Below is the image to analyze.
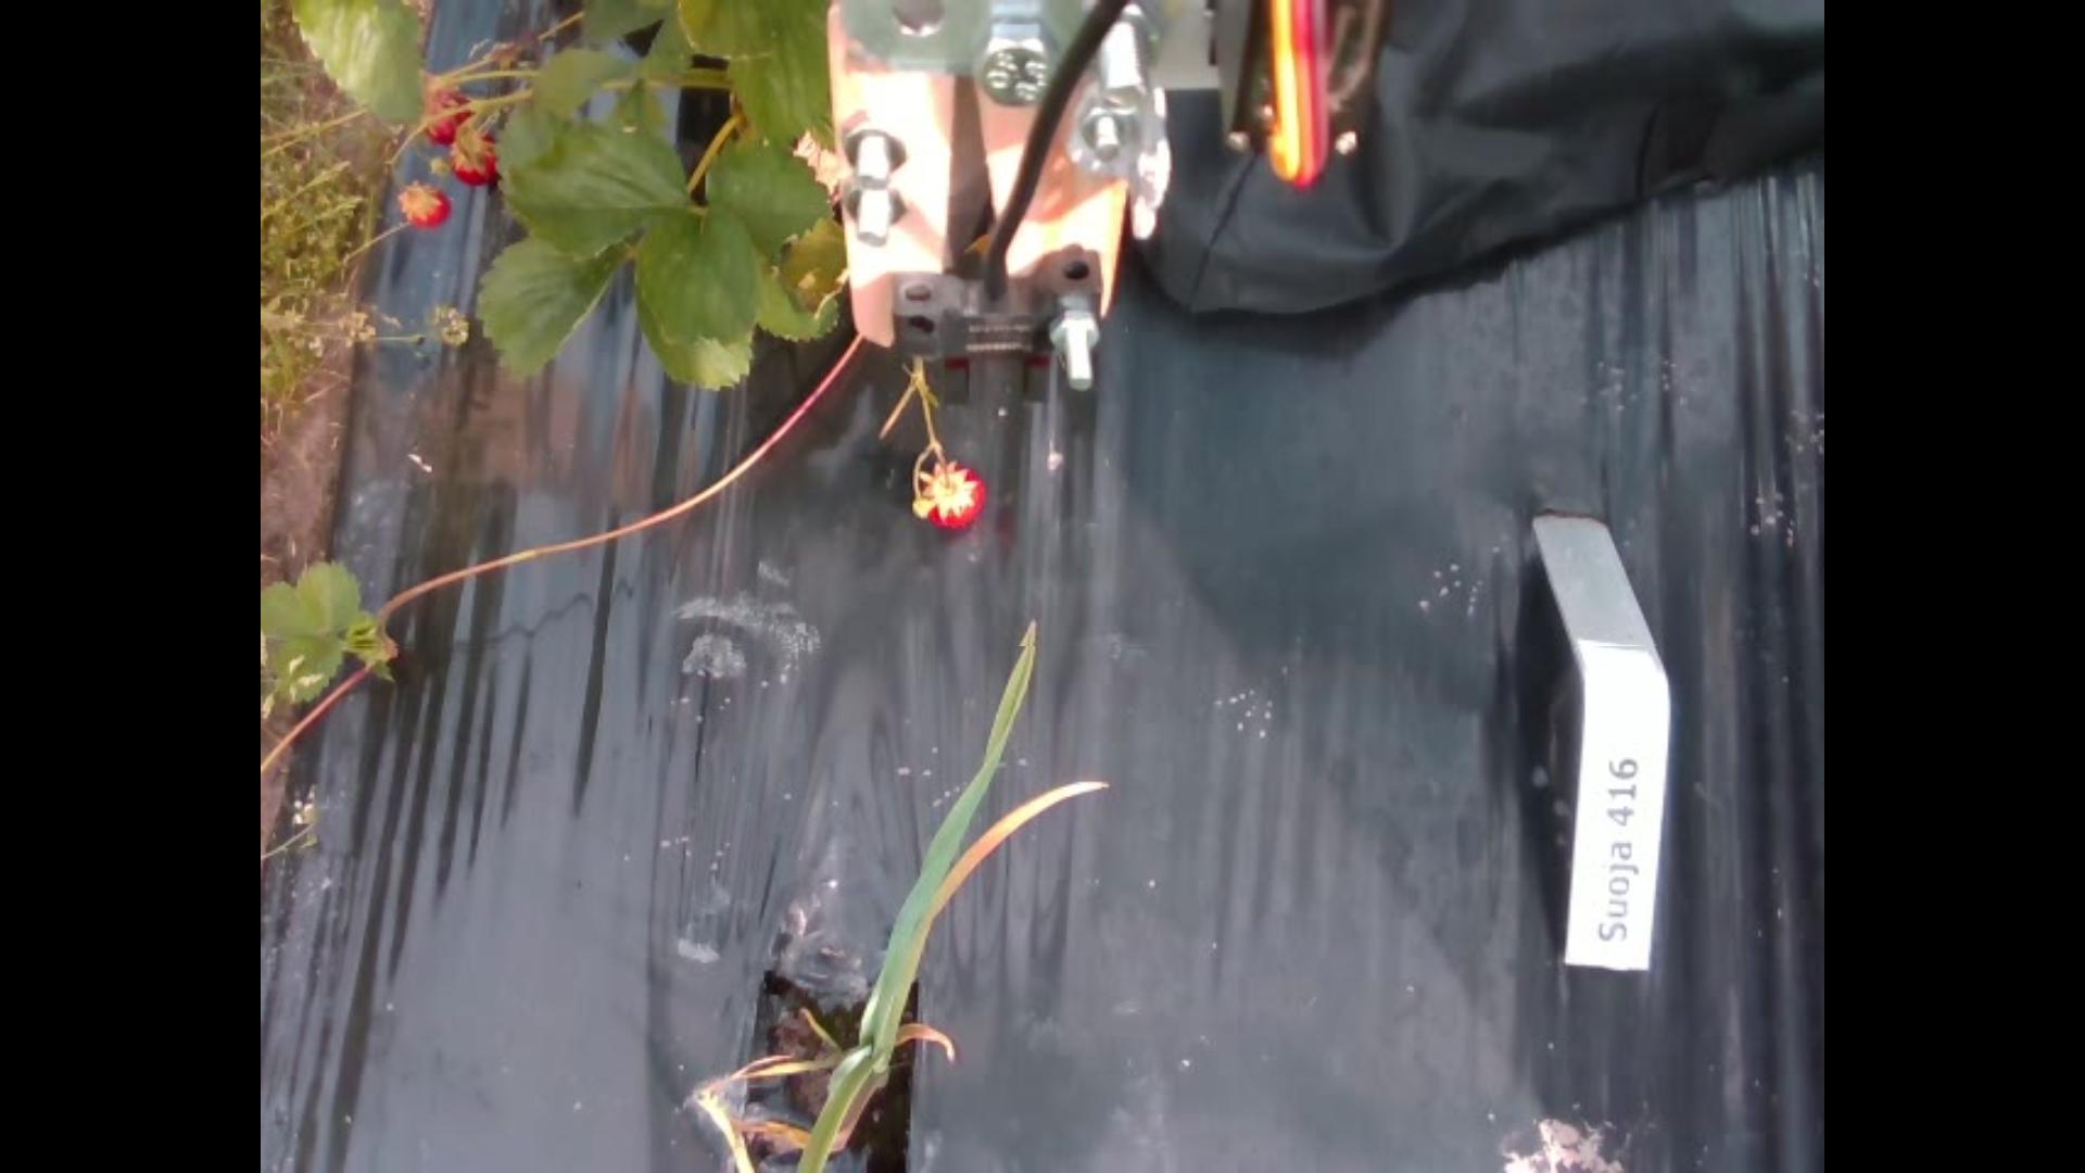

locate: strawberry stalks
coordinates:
[461,110,490,163]
[370,159,424,210]
[907,371,958,502]
[435,67,500,99]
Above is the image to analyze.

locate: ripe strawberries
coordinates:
[393,191,457,229]
[440,125,513,184]
[407,94,492,145]
[914,458,990,534]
